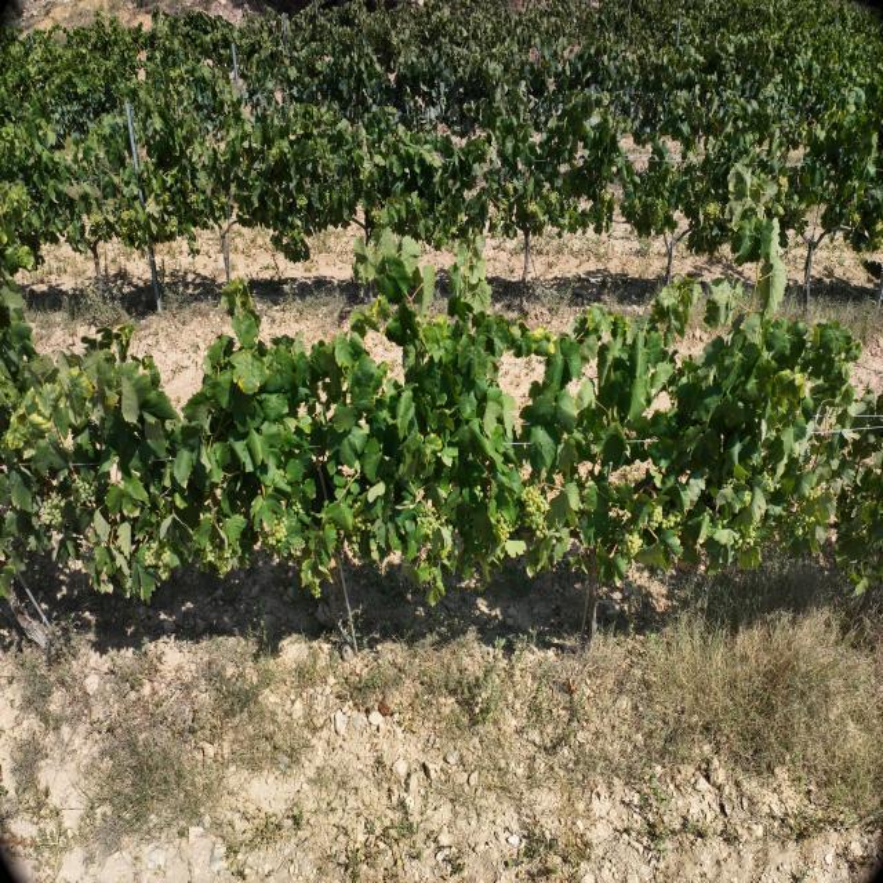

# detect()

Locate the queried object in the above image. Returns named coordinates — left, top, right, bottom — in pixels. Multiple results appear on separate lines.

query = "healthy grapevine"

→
left=453, top=269, right=866, bottom=682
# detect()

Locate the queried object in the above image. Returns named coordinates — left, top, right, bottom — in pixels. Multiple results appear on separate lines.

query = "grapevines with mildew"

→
left=188, top=304, right=452, bottom=670
left=0, top=324, right=185, bottom=688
